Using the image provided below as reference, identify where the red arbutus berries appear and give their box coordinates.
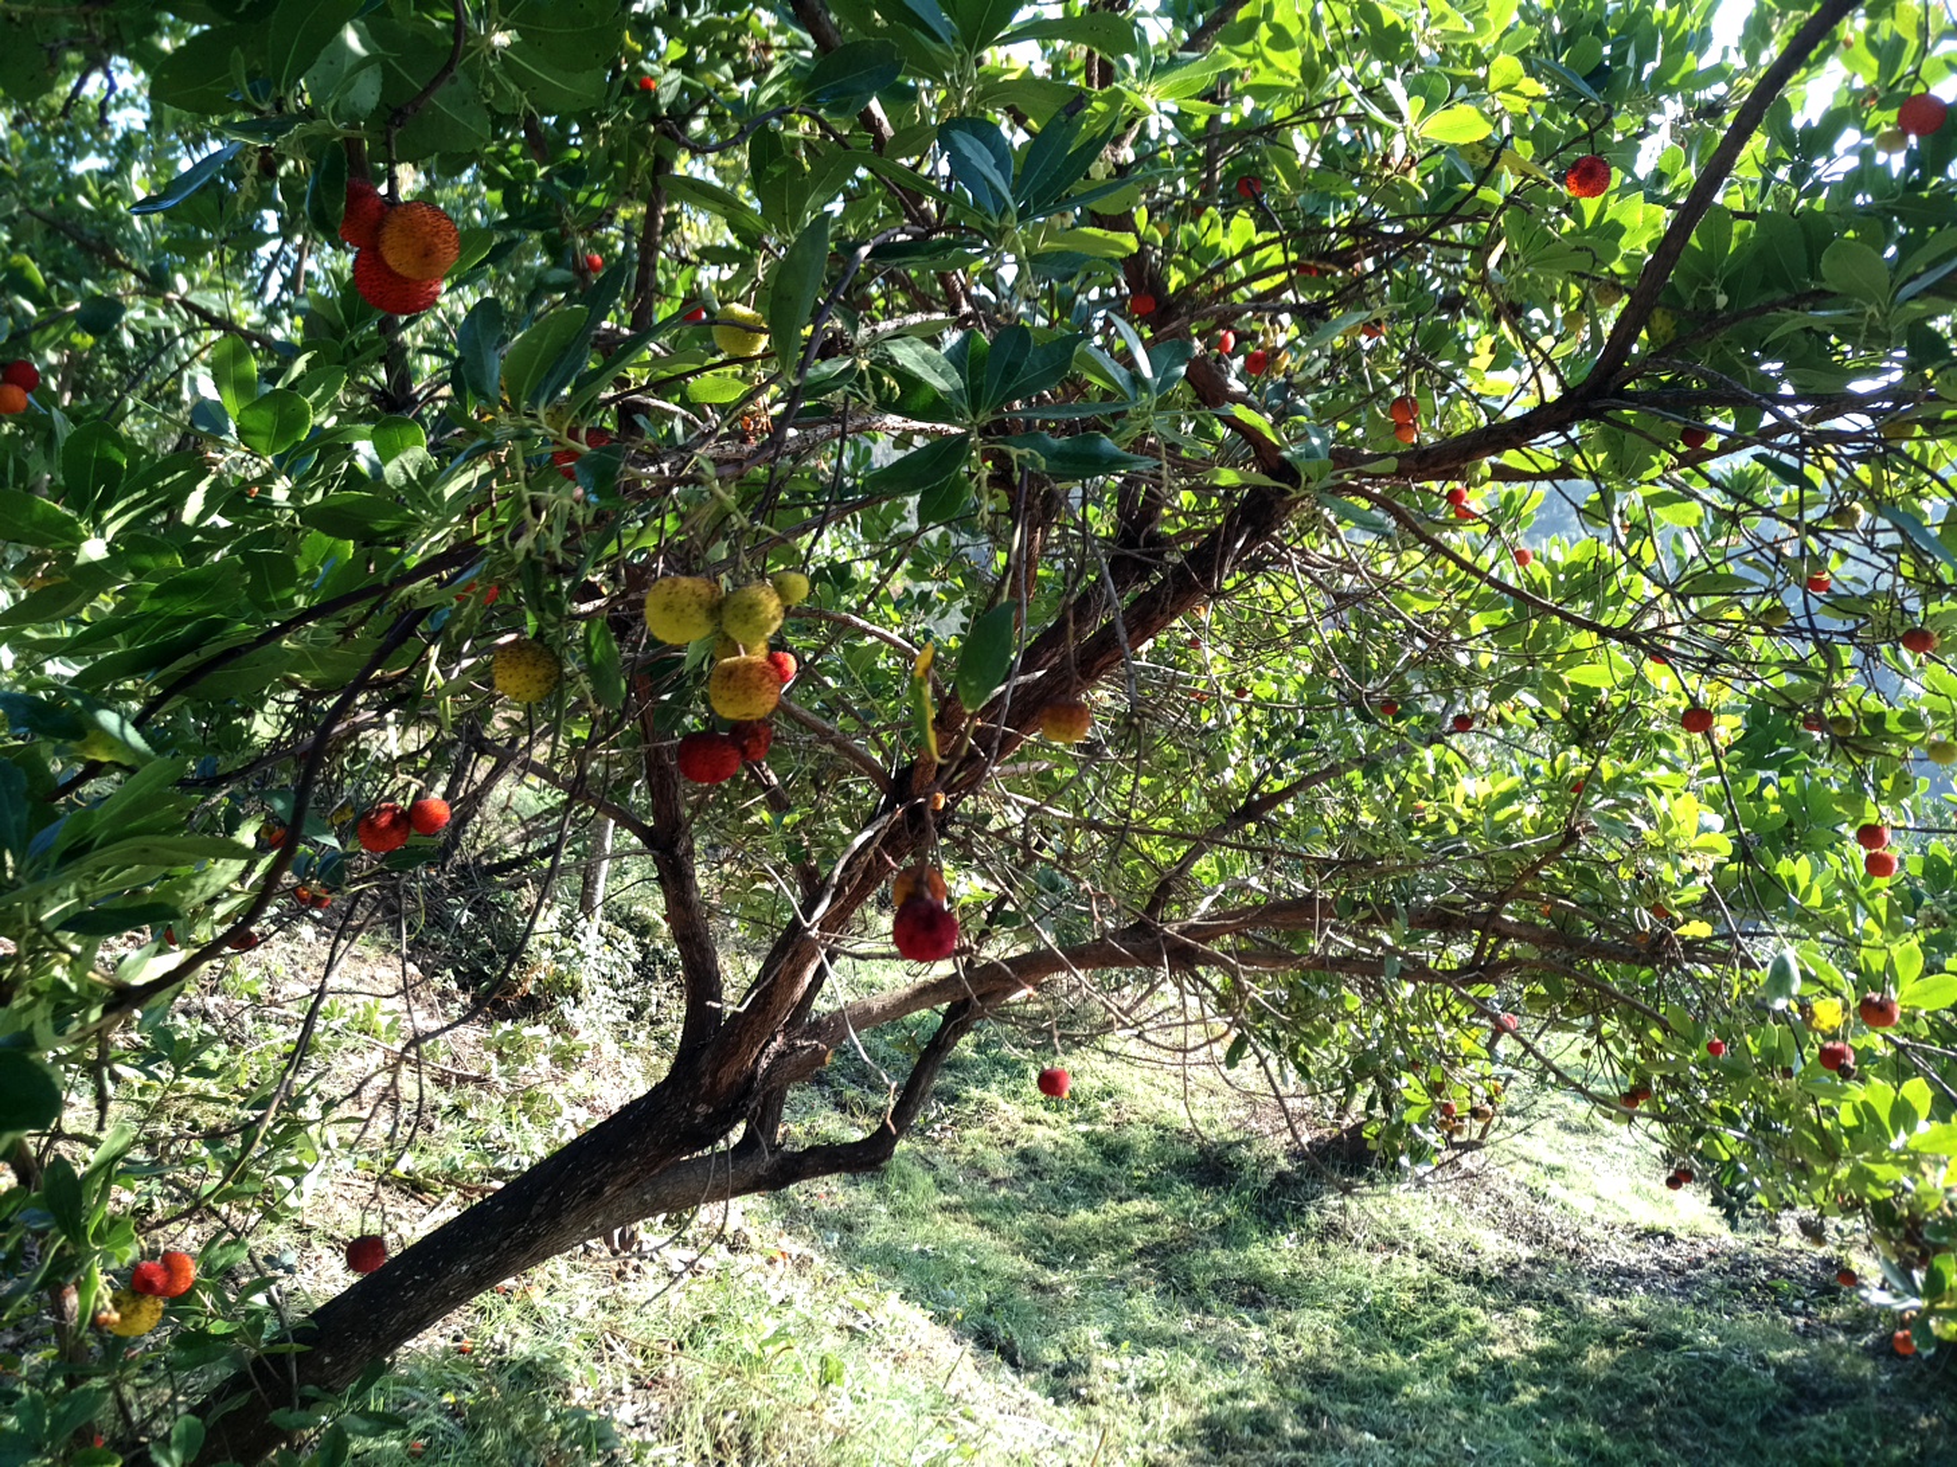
[1242,348,1269,375]
[1898,92,1949,135]
[678,297,707,321]
[1388,394,1421,425]
[346,1233,387,1275]
[676,731,740,783]
[1234,687,1248,698]
[725,719,774,763]
[162,1250,204,1297]
[353,242,441,314]
[1666,1176,1681,1190]
[1801,710,1825,733]
[1857,990,1899,1027]
[1904,627,1935,655]
[1623,1089,1646,1106]
[1863,851,1897,878]
[893,903,959,960]
[1647,645,1672,667]
[1707,1038,1725,1057]
[553,417,612,460]
[1498,1014,1515,1030]
[1892,1330,1915,1356]
[1682,426,1706,448]
[1212,329,1236,355]
[1452,713,1473,731]
[1566,155,1611,199]
[1129,291,1156,316]
[1653,902,1669,919]
[1681,708,1713,732]
[1380,698,1398,714]
[1,360,40,392]
[1037,1068,1071,1097]
[319,170,388,249]
[1857,823,1889,847]
[1805,573,1830,594]
[1514,548,1532,566]
[1441,1102,1457,1116]
[133,1257,168,1293]
[1838,1269,1858,1288]
[1817,1041,1852,1070]
[1189,636,1201,648]
[1448,486,1470,506]
[359,800,410,853]
[640,76,656,90]
[413,796,455,833]
[580,254,603,275]
[1235,171,1263,200]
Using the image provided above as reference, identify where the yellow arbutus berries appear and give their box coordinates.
[107,1279,160,1337]
[491,634,560,702]
[709,652,783,722]
[0,385,28,415]
[1438,1120,1453,1131]
[379,201,458,280]
[1454,1125,1465,1135]
[1394,420,1422,444]
[892,865,949,914]
[1036,695,1092,744]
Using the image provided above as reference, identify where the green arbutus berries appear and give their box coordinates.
[1828,714,1854,737]
[1594,280,1624,308]
[643,572,719,646]
[1872,127,1904,152]
[1765,606,1789,630]
[1562,310,1589,335]
[771,568,813,608]
[714,307,768,357]
[1929,738,1957,763]
[720,579,785,647]
[1830,501,1862,531]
